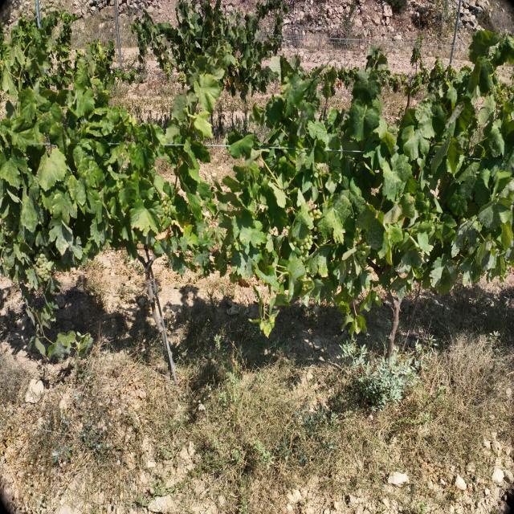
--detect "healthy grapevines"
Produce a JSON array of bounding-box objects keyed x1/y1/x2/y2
[
  {"x1": 0, "y1": 70, "x2": 248, "y2": 402},
  {"x1": 234, "y1": 43, "x2": 514, "y2": 390}
]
